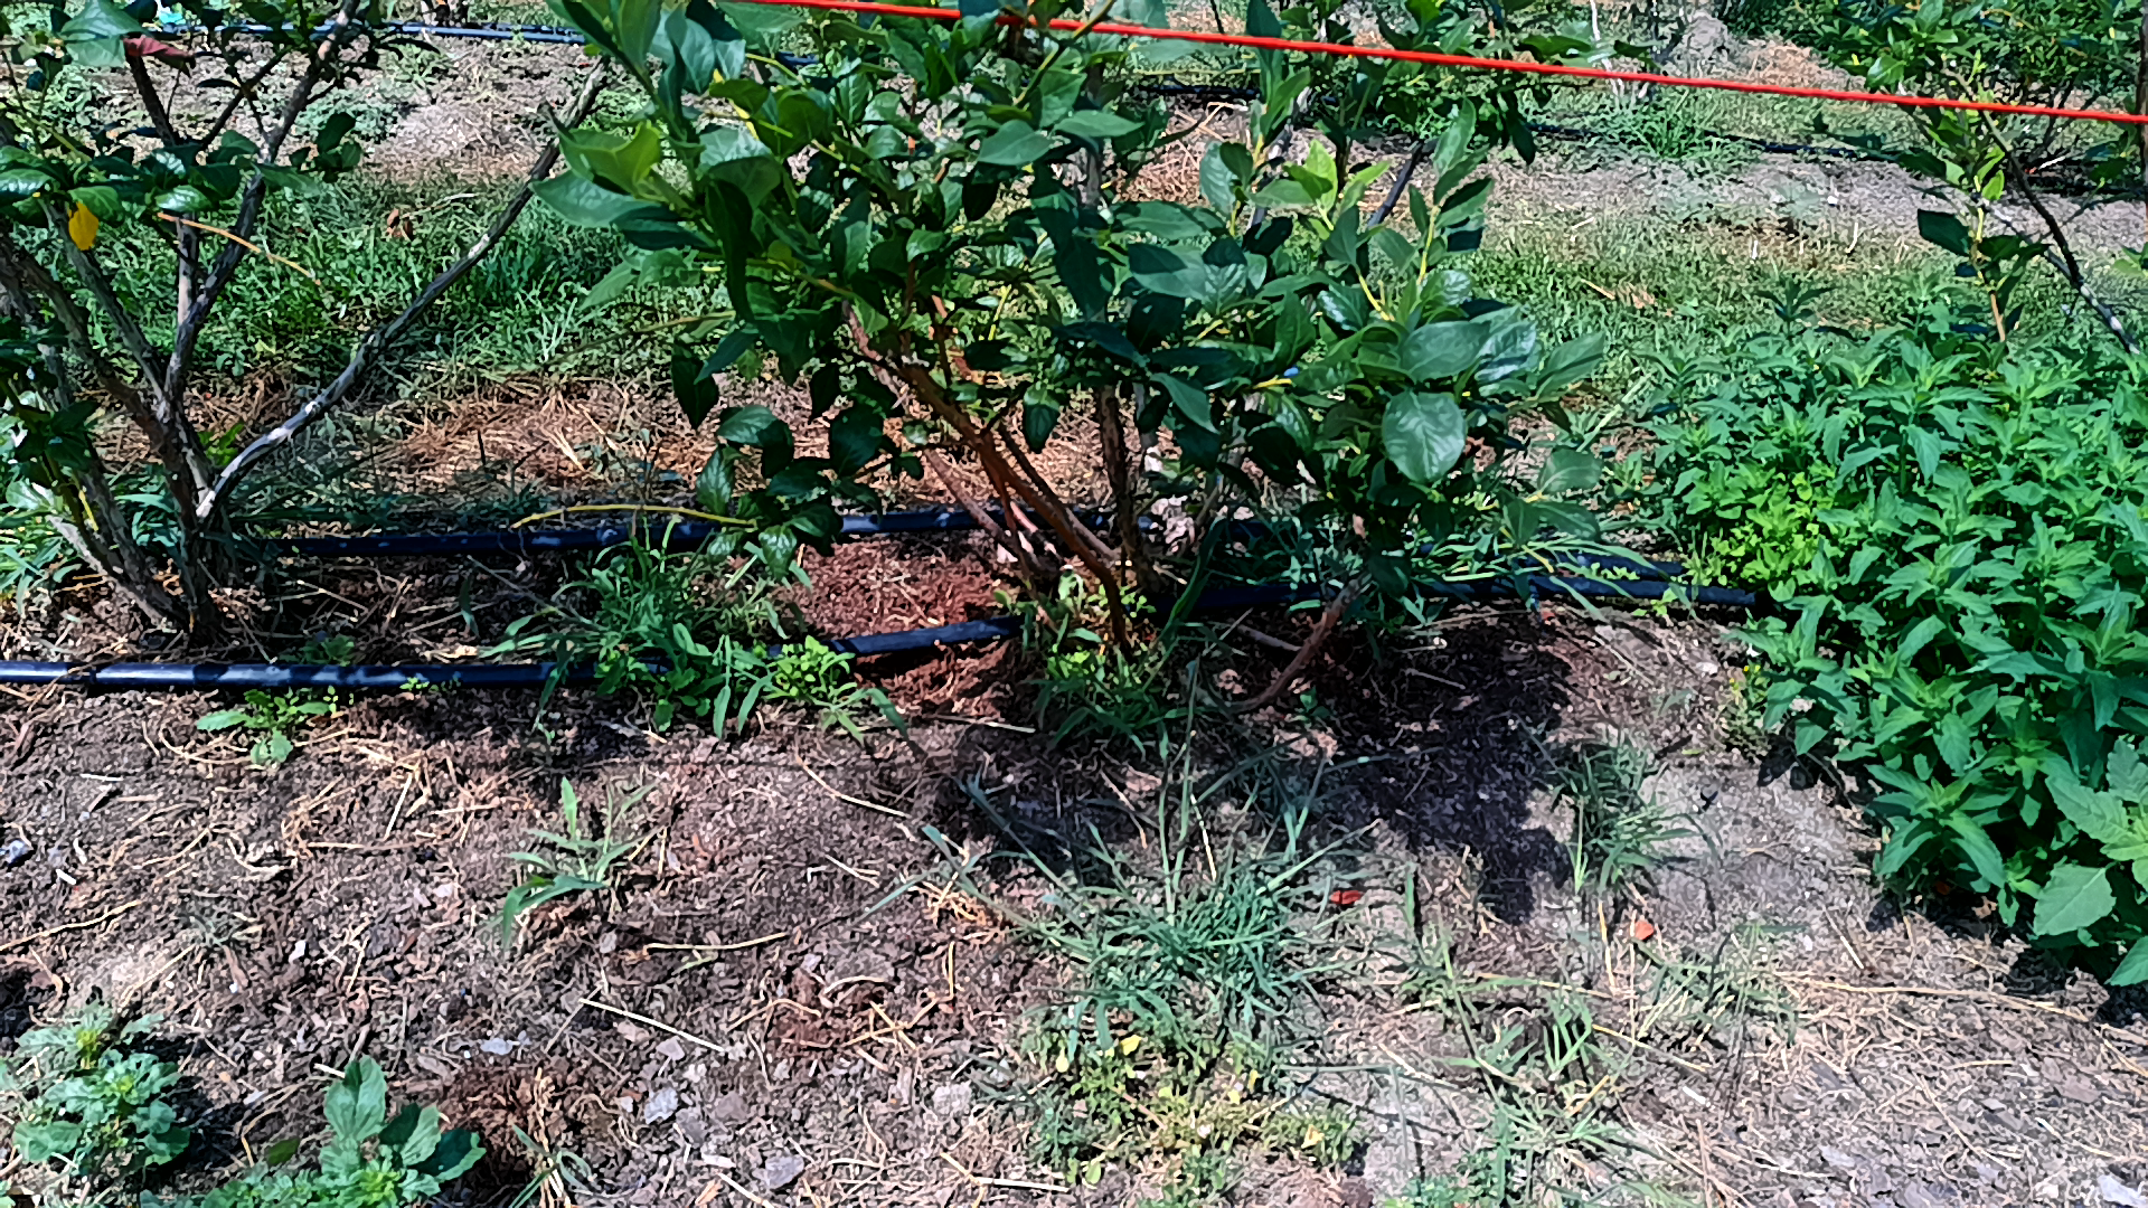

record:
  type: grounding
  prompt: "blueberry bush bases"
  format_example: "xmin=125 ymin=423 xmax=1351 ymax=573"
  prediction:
xmin=866 ymin=315 xmax=1409 ymax=768
xmin=36 ymin=398 xmax=352 ymax=688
